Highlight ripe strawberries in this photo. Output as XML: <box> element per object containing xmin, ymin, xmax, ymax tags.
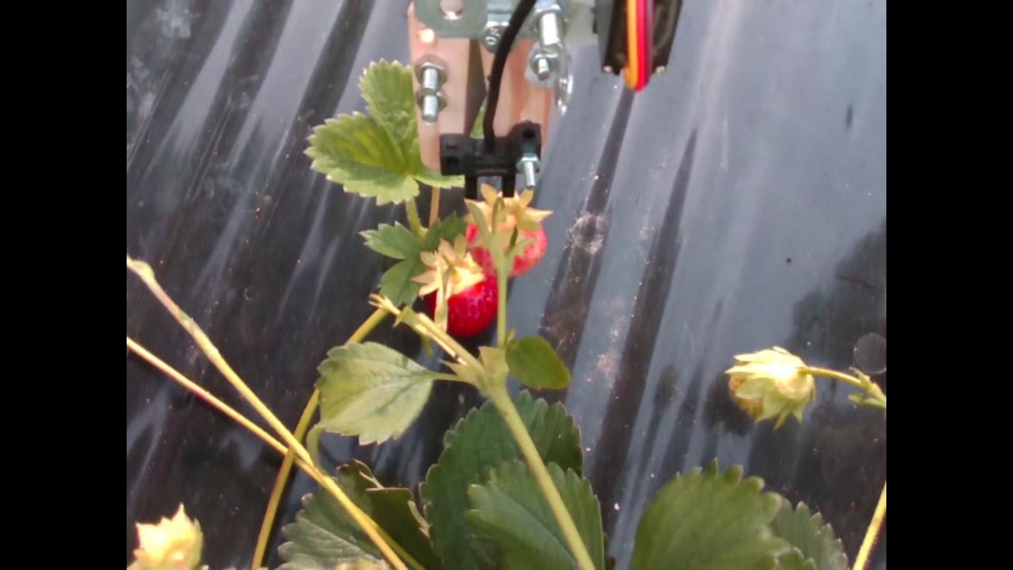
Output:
<box><xmin>464</xmin><ymin>196</ymin><xmax>549</xmax><ymax>276</ymax></box>
<box><xmin>415</xmin><ymin>248</ymin><xmax>505</xmax><ymax>341</ymax></box>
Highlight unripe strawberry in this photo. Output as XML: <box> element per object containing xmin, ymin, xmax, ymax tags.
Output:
<box><xmin>725</xmin><ymin>339</ymin><xmax>817</xmax><ymax>428</ymax></box>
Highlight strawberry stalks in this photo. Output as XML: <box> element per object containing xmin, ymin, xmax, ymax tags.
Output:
<box><xmin>792</xmin><ymin>354</ymin><xmax>843</xmax><ymax>388</ymax></box>
<box><xmin>488</xmin><ymin>195</ymin><xmax>513</xmax><ymax>237</ymax></box>
<box><xmin>422</xmin><ymin>250</ymin><xmax>457</xmax><ymax>326</ymax></box>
